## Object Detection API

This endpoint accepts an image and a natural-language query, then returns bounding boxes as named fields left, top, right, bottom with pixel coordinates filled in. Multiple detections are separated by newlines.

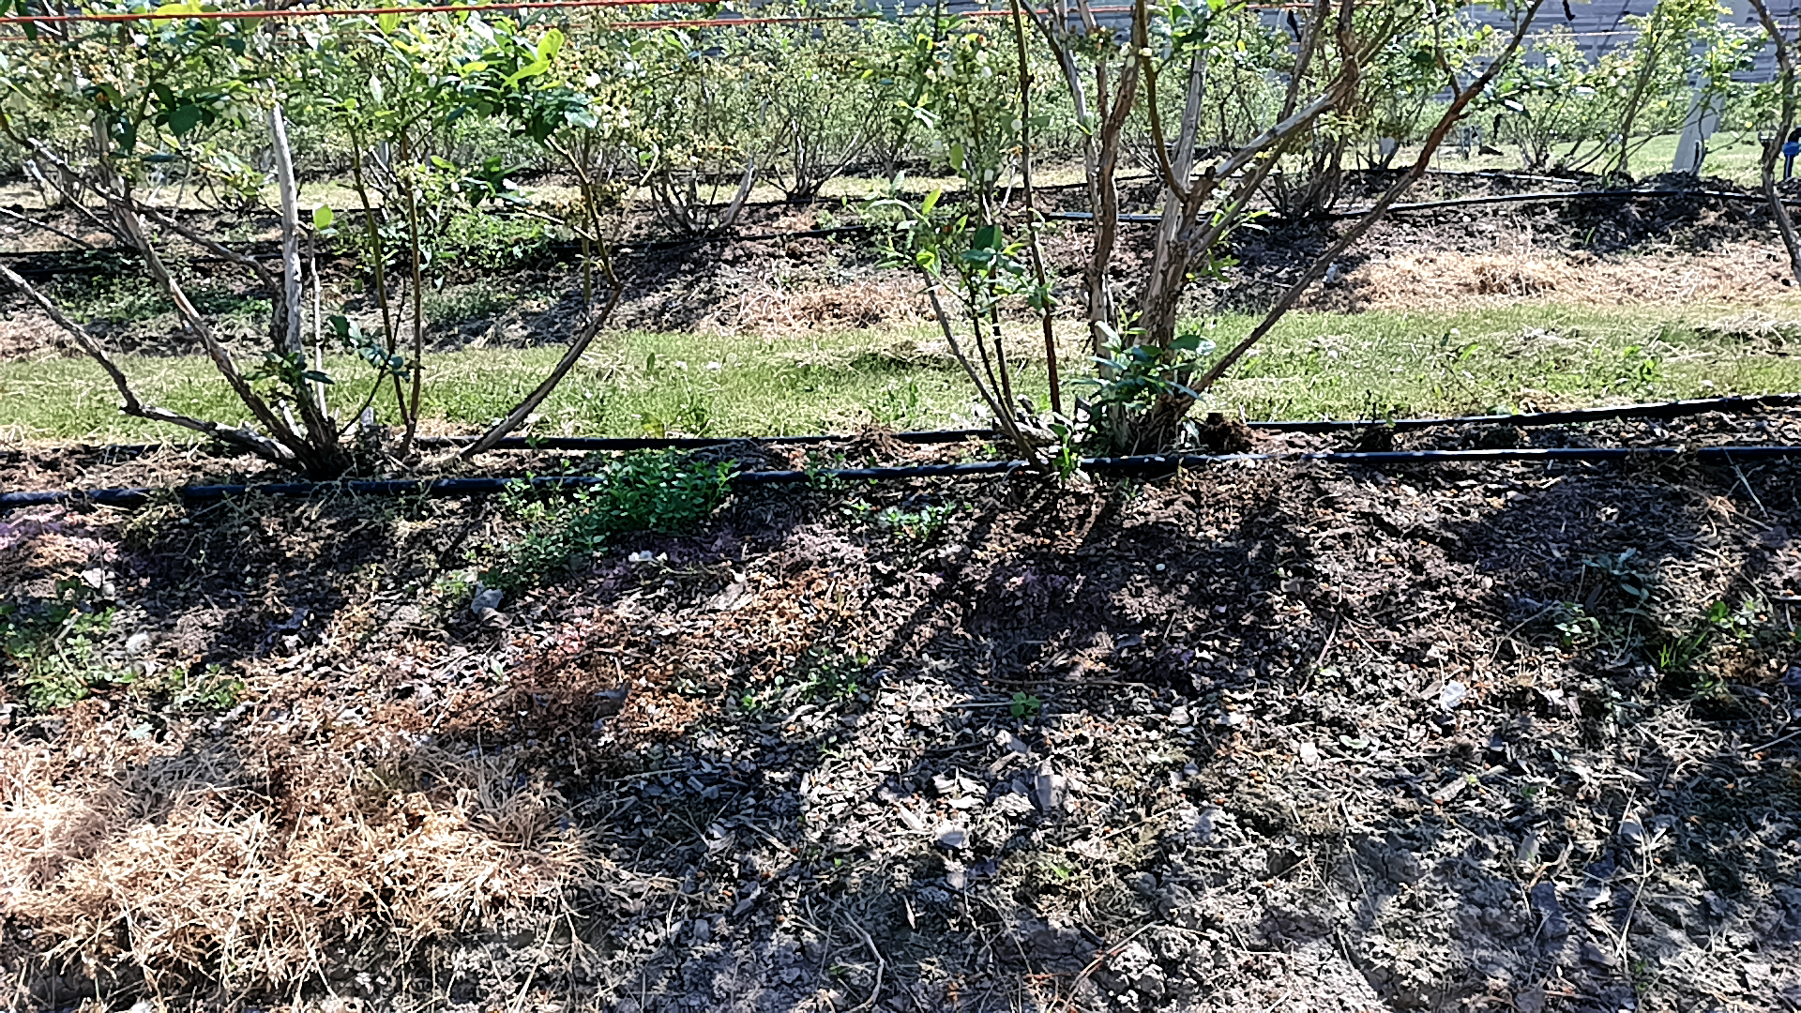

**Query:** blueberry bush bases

left=1509, top=133, right=1626, bottom=197
left=221, top=364, right=447, bottom=506
left=647, top=194, right=739, bottom=263
left=920, top=272, right=1266, bottom=526
left=7, top=113, right=159, bottom=245
left=1244, top=151, right=1385, bottom=243
left=773, top=167, right=833, bottom=219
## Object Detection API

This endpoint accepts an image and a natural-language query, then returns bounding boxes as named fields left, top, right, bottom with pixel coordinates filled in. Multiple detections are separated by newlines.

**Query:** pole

left=1675, top=24, right=1726, bottom=181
